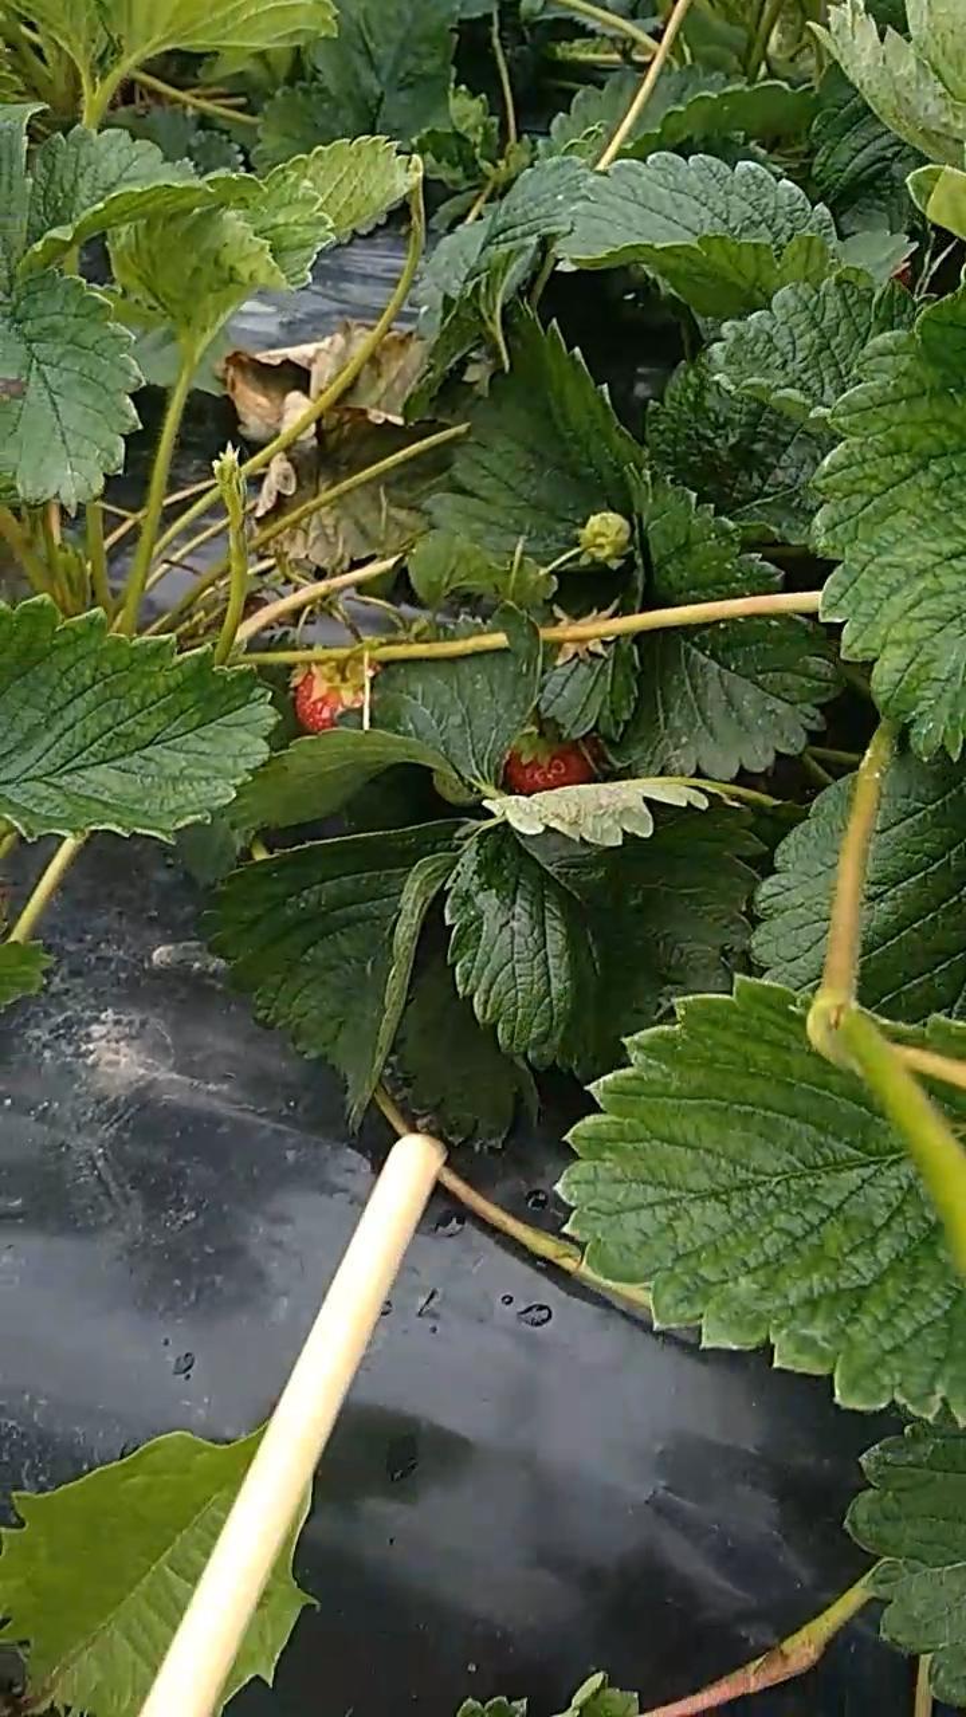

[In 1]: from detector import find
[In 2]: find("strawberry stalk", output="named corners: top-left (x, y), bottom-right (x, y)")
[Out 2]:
top-left (547, 516), bottom-right (608, 563)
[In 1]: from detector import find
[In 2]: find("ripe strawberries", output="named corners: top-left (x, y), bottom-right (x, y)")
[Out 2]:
top-left (509, 744), bottom-right (594, 791)
top-left (293, 659), bottom-right (374, 735)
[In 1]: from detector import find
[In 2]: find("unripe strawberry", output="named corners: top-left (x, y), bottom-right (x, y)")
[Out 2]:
top-left (582, 510), bottom-right (632, 567)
